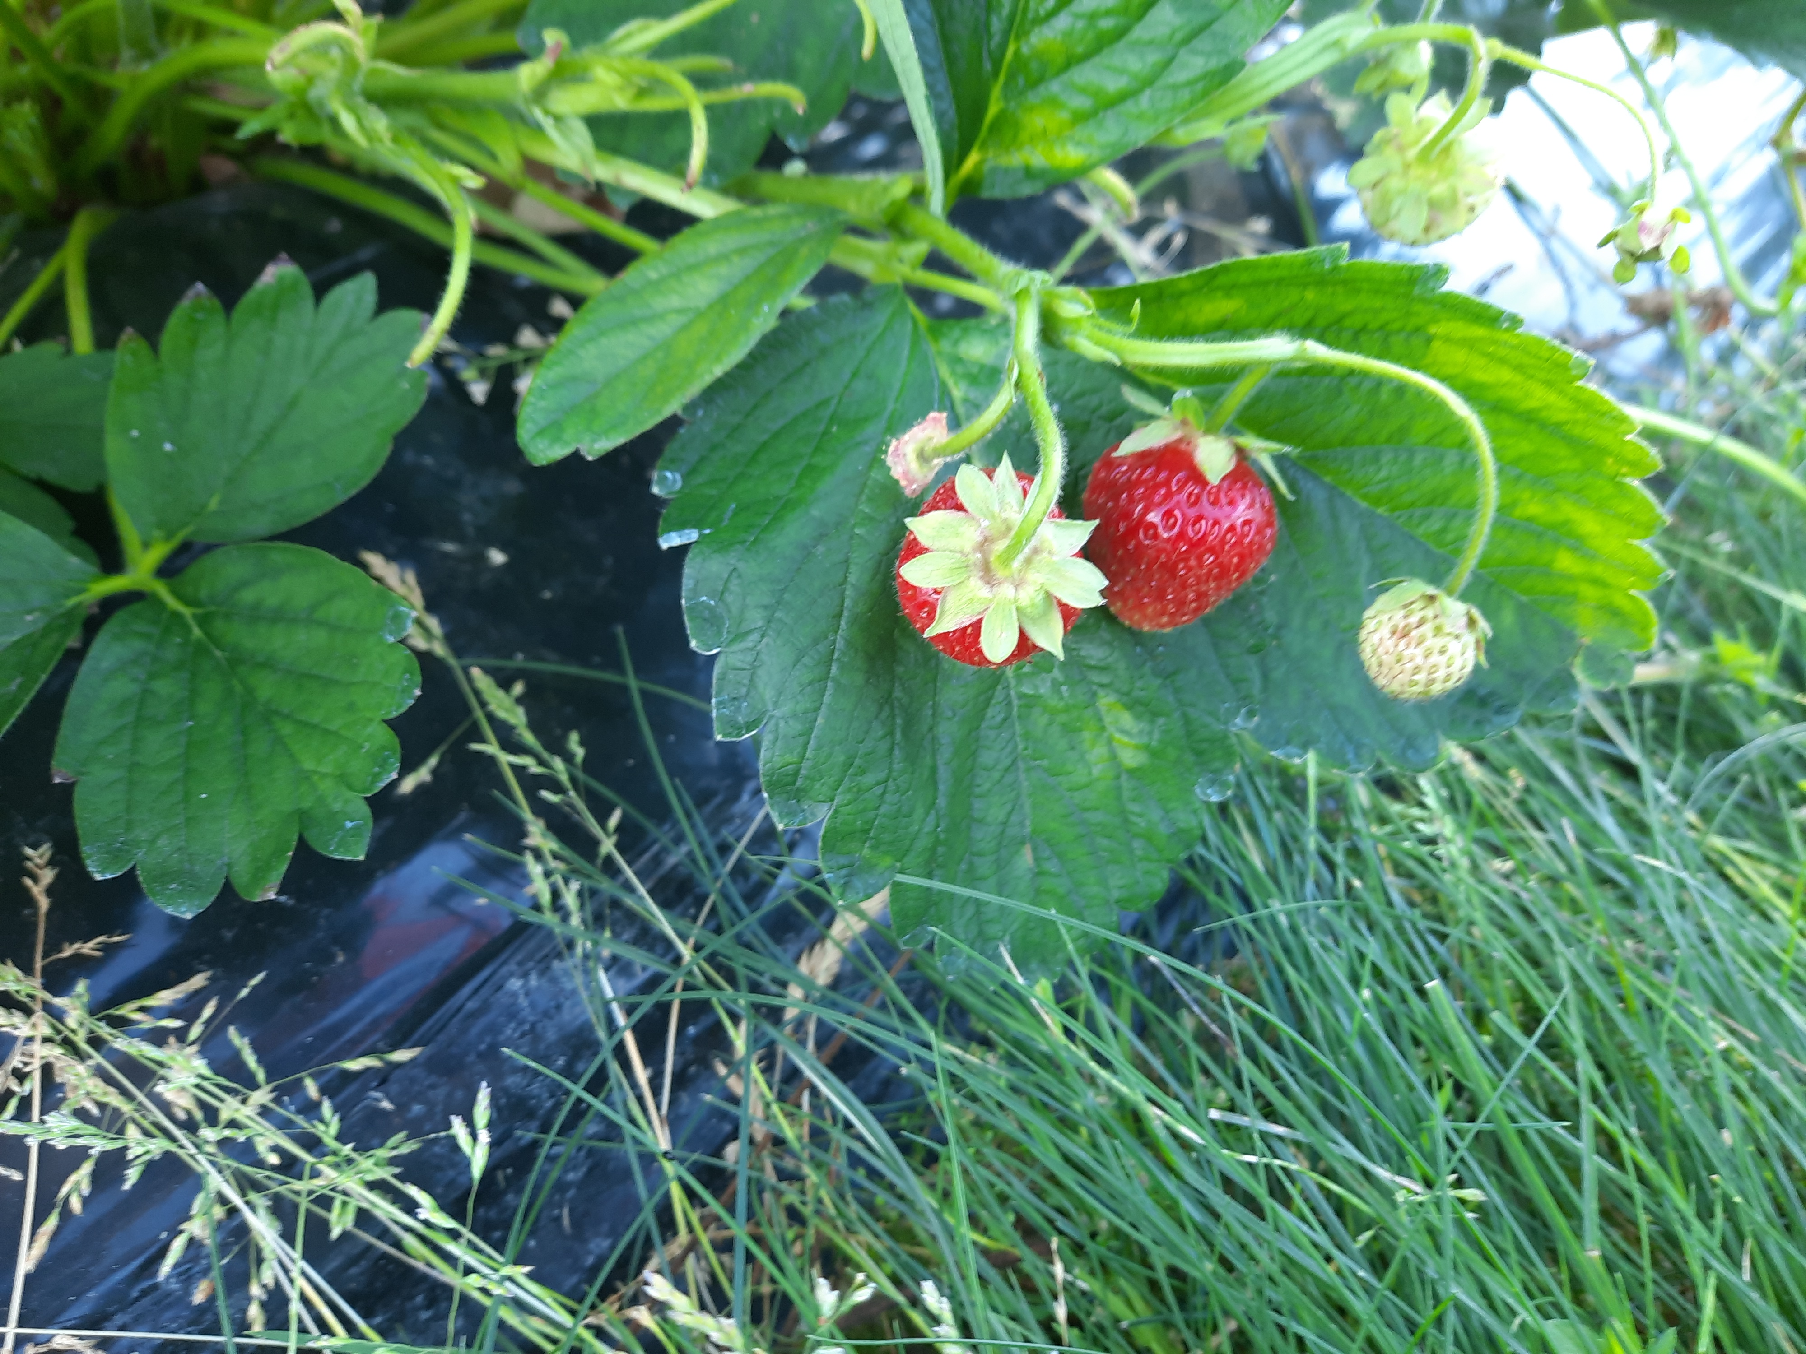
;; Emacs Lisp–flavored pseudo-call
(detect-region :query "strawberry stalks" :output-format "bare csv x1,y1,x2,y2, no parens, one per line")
1158,338,1321,486
1396,369,1519,627
956,328,1081,595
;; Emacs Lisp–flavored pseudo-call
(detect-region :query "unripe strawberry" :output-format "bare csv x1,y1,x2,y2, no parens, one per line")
1372,576,1479,705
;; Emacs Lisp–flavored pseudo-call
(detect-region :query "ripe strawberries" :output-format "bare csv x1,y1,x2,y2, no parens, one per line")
1083,436,1286,639
905,477,1084,655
